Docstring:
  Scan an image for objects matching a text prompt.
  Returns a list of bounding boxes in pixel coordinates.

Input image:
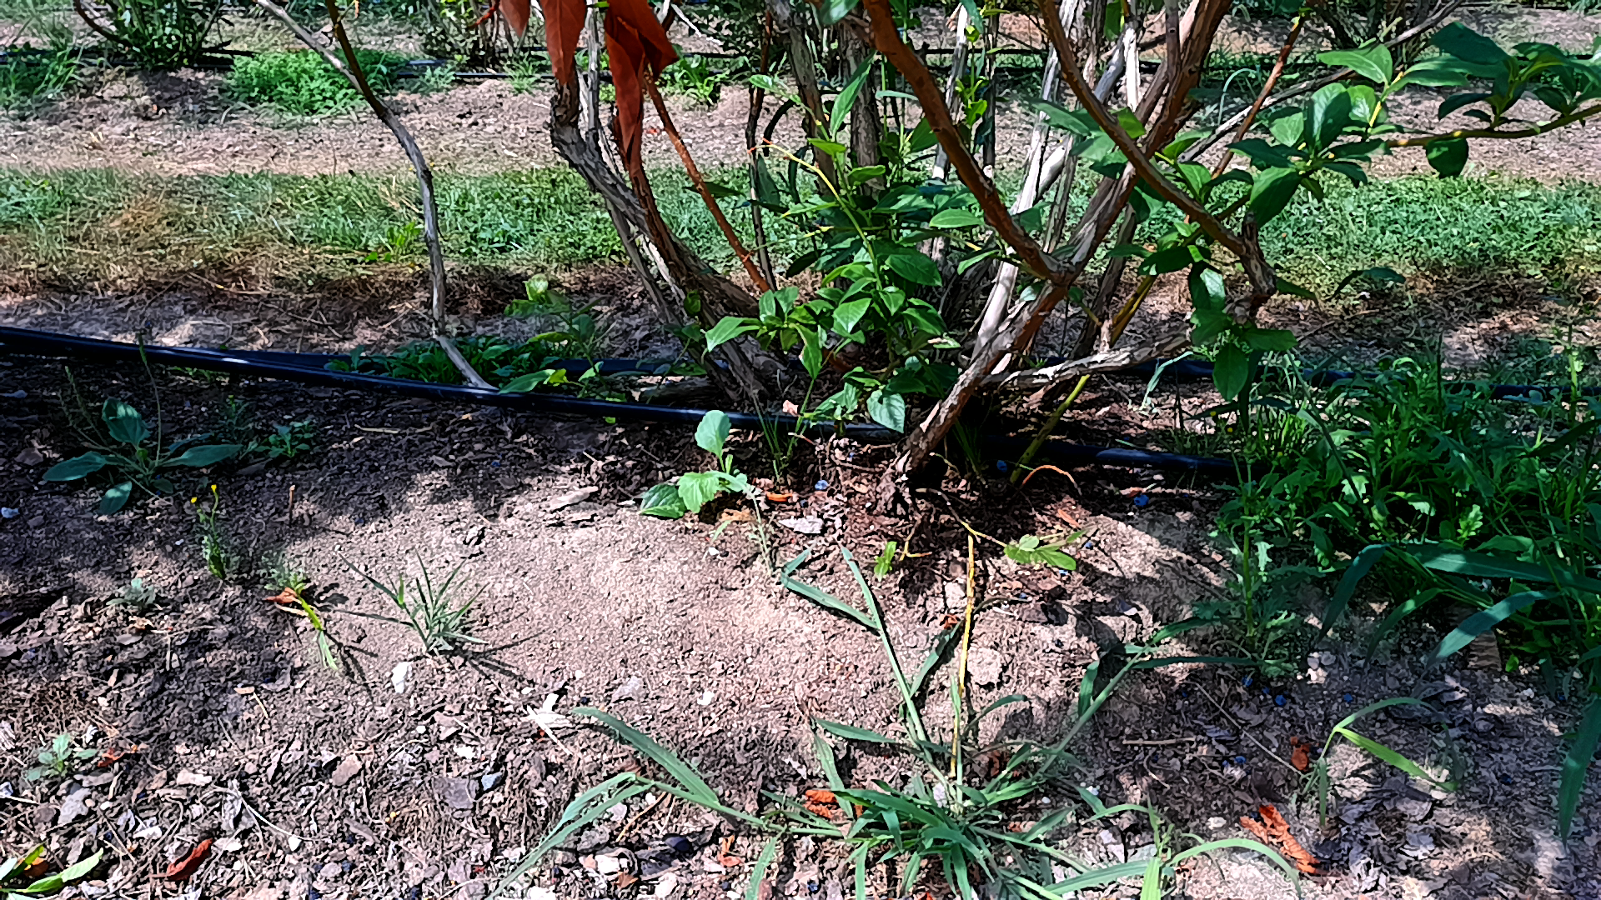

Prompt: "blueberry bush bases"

[77,0,216,82]
[658,210,1177,554]
[393,7,551,88]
